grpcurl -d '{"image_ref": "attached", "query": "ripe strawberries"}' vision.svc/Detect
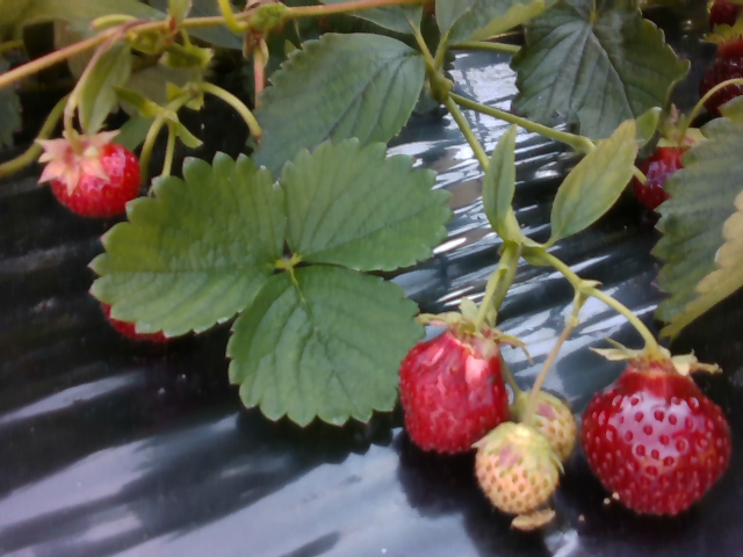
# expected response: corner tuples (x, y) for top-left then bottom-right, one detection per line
(404, 326), (519, 455)
(702, 0), (743, 106)
(582, 365), (733, 516)
(50, 135), (143, 219)
(640, 136), (720, 205)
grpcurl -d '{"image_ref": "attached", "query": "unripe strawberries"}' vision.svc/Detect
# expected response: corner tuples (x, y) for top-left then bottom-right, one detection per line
(517, 389), (574, 451)
(478, 433), (563, 514)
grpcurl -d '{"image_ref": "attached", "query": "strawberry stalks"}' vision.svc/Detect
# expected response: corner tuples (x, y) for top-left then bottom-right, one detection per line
(457, 257), (510, 351)
(582, 283), (676, 384)
(670, 81), (743, 152)
(67, 48), (103, 155)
